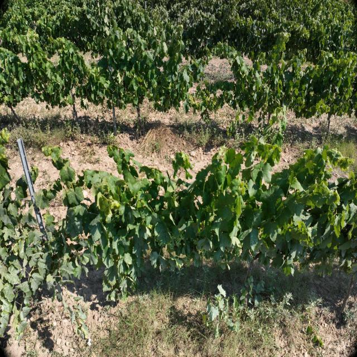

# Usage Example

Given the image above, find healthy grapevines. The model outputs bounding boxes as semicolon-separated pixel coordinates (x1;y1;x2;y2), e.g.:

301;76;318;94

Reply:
37;146;209;313
204;128;357;291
